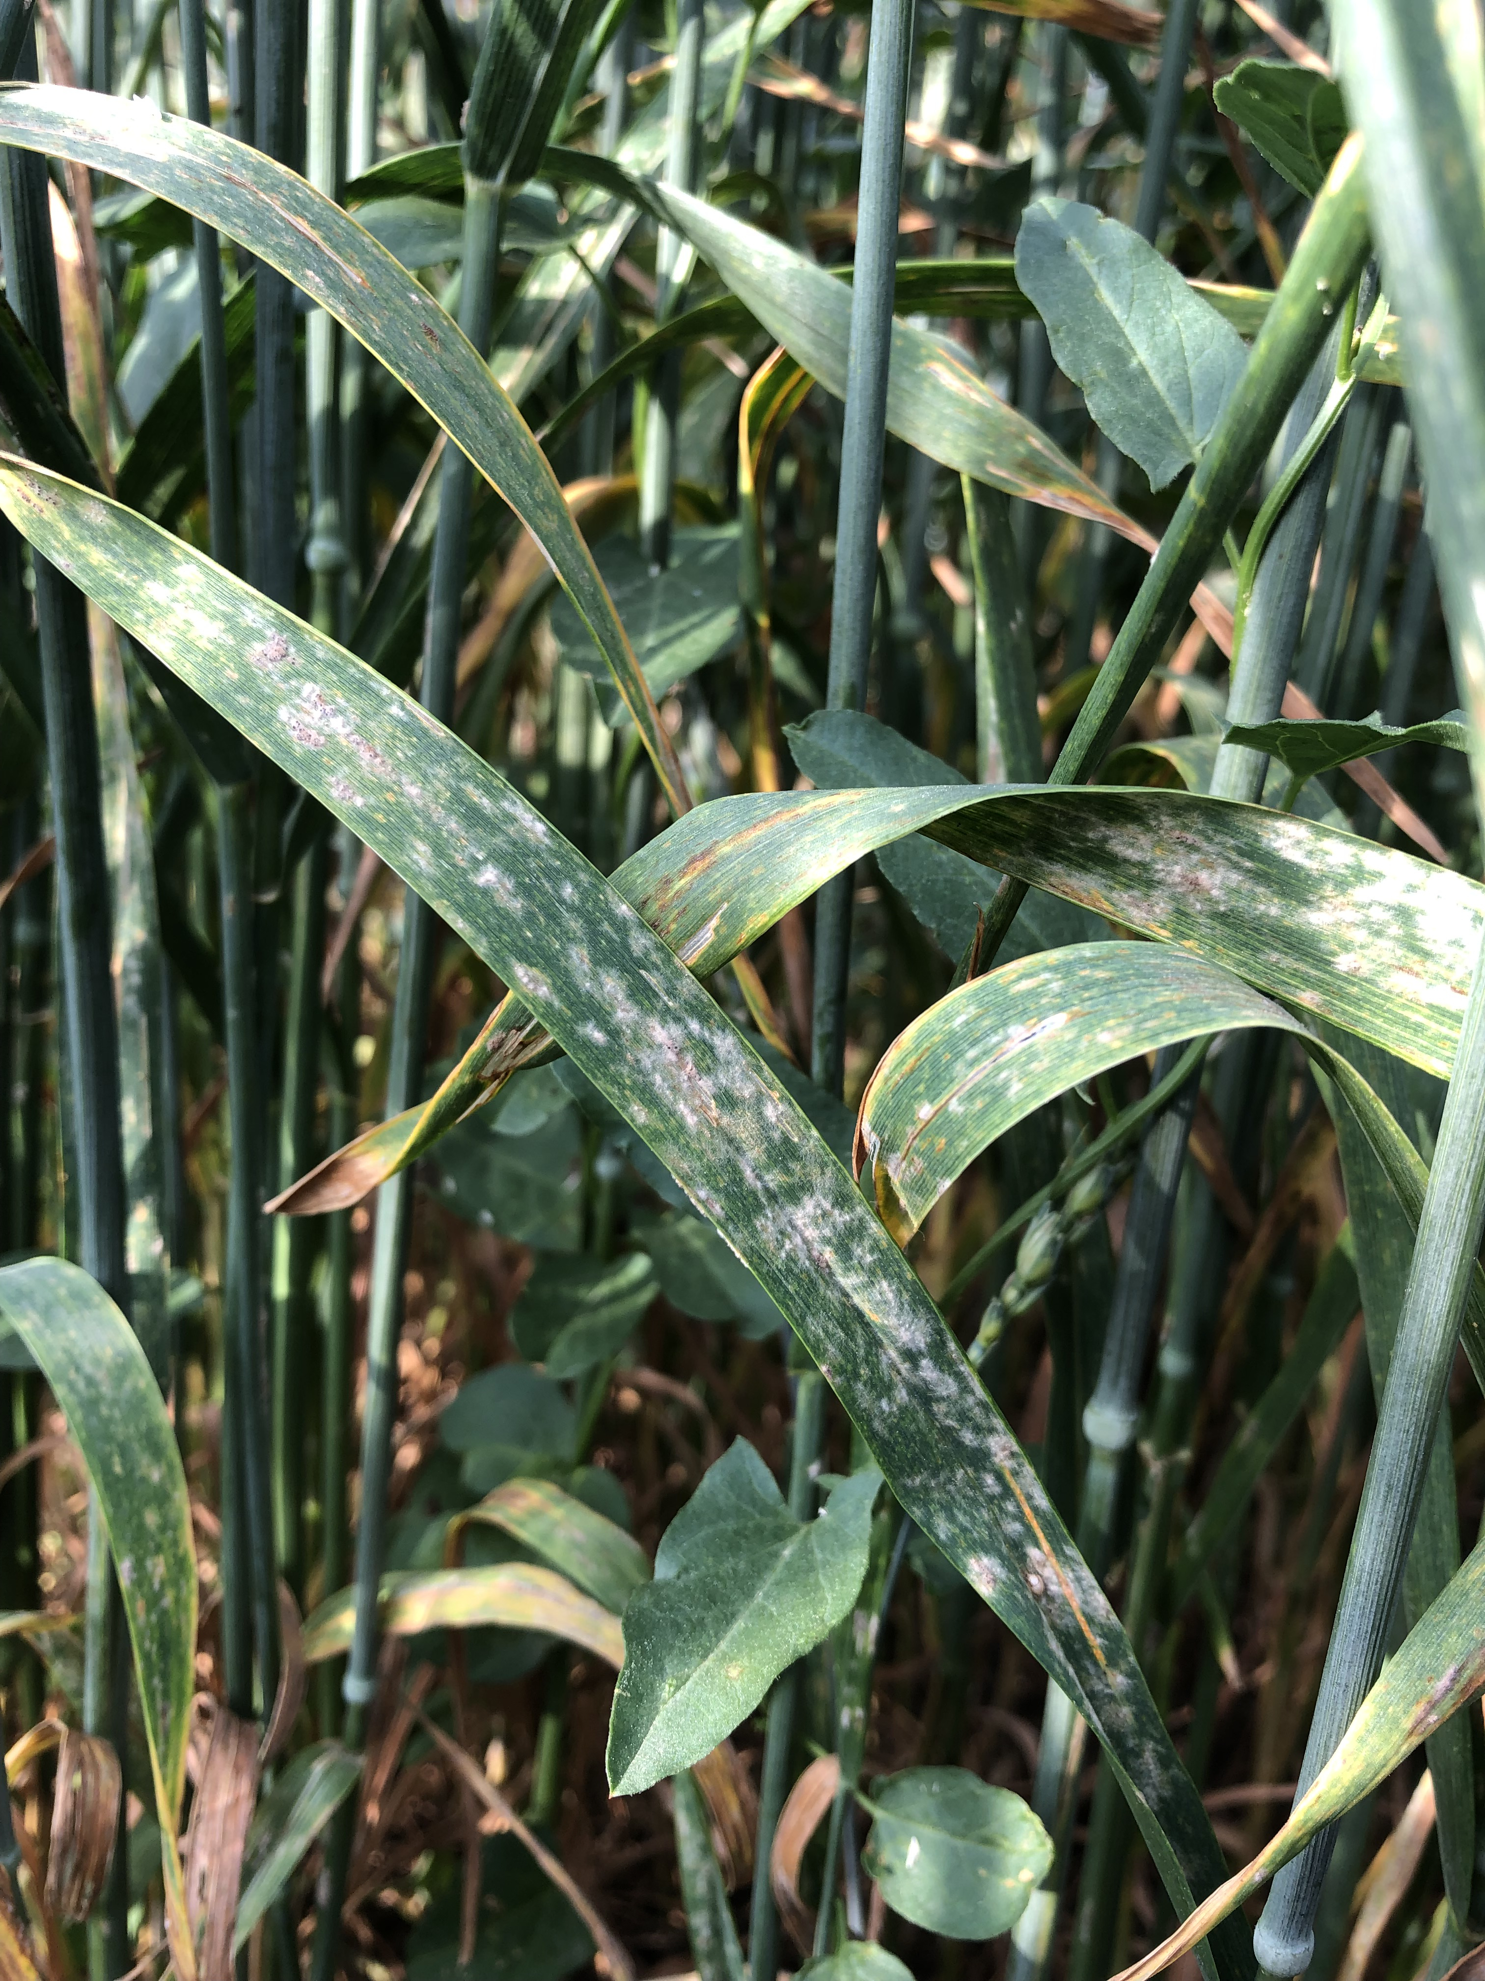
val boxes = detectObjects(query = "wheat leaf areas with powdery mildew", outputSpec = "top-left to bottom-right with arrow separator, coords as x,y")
988,757 -> 1485,1057
41,468 -> 1206,1860
41,1374 -> 218,1712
